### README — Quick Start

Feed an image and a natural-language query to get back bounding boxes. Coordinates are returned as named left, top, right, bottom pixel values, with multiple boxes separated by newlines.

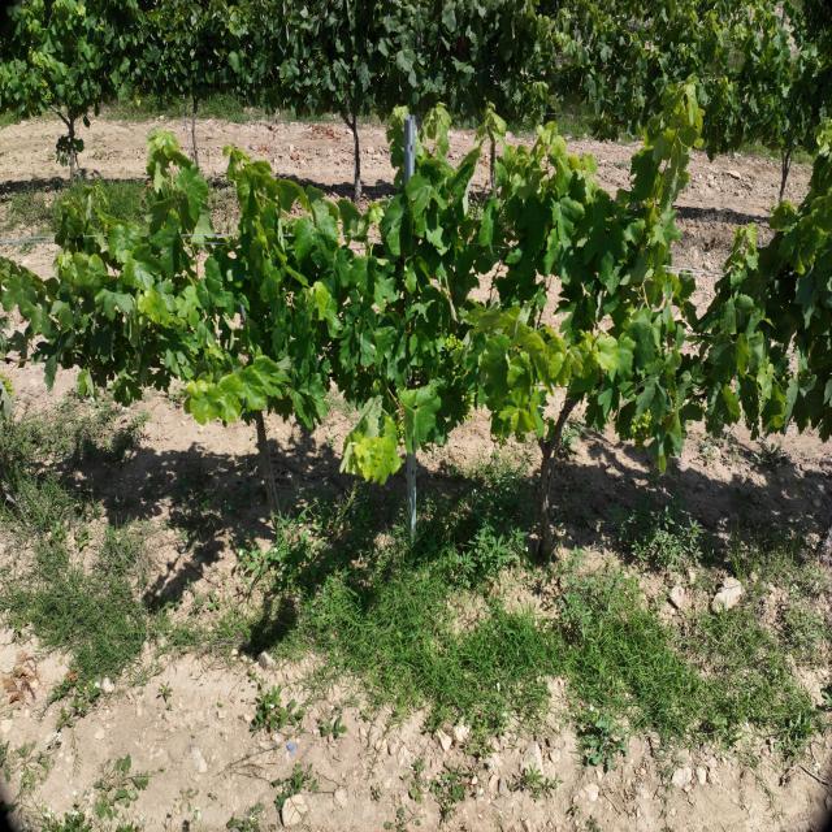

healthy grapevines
left=0, top=131, right=341, bottom=565
left=339, top=118, right=701, bottom=574
left=705, top=130, right=832, bottom=577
